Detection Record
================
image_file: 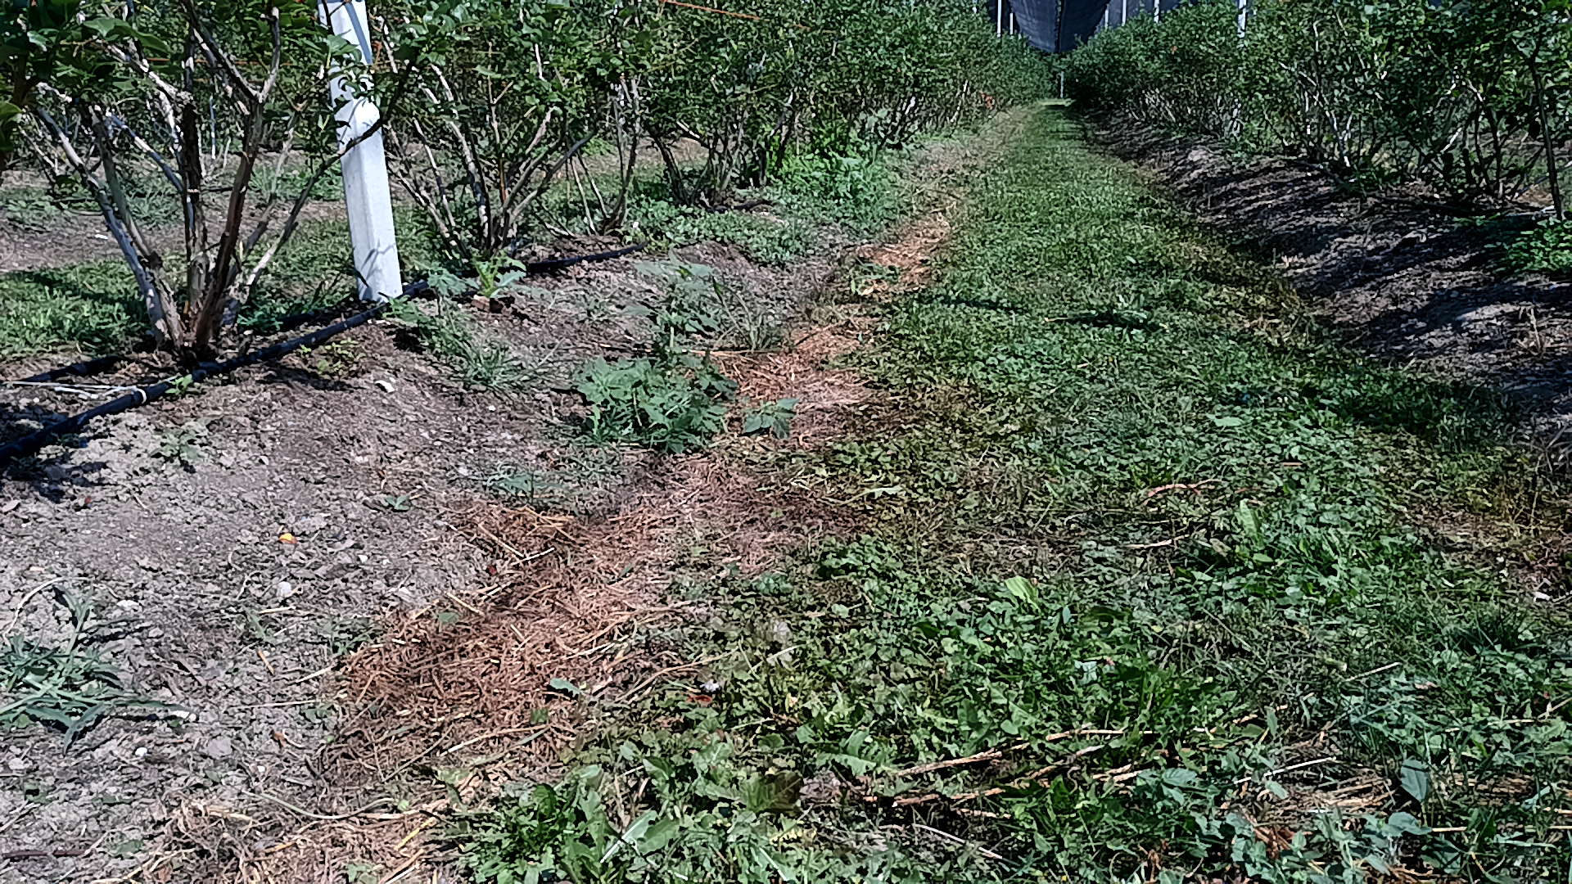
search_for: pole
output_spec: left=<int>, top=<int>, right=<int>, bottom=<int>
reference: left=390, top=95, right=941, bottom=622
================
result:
left=323, top=0, right=399, bottom=323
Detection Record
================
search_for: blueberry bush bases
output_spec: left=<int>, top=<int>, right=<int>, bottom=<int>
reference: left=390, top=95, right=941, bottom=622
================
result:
left=97, top=235, right=301, bottom=391
left=547, top=167, right=648, bottom=251
left=418, top=186, right=555, bottom=293
left=644, top=148, right=742, bottom=230
left=1282, top=101, right=1395, bottom=190
left=1422, top=133, right=1538, bottom=235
